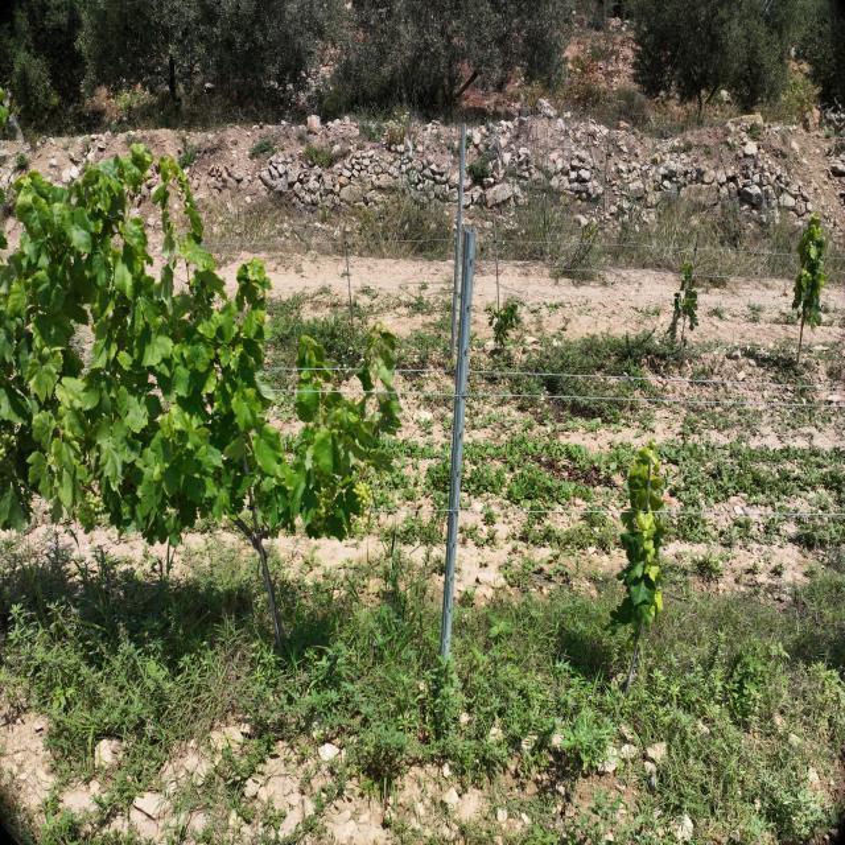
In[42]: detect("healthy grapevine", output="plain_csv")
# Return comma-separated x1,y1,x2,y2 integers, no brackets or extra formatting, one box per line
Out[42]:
0,151,407,704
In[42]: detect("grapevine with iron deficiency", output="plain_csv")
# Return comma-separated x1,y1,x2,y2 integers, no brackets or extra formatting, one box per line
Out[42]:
595,434,687,715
